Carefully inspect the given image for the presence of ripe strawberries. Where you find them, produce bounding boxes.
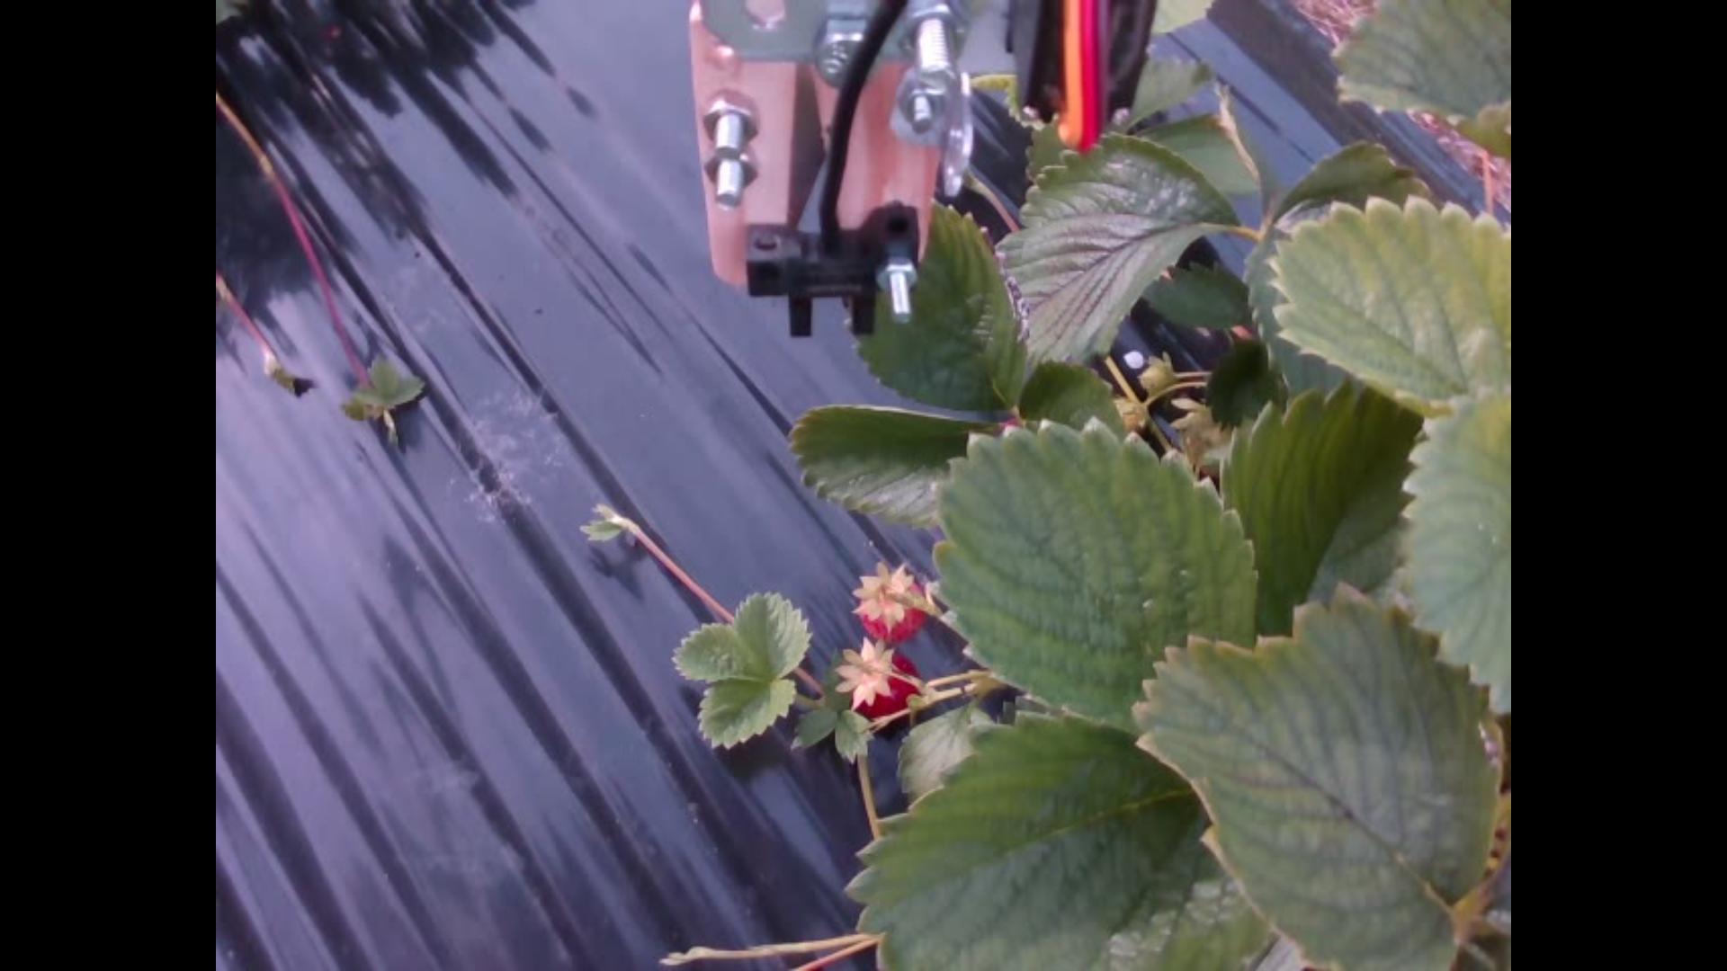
[839,642,922,726]
[859,567,934,640]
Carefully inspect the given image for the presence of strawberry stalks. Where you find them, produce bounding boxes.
[855,662,955,699]
[884,584,962,613]
[1137,380,1200,410]
[1168,357,1219,387]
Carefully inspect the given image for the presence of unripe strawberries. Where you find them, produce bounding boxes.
[1132,352,1180,393]
[1101,390,1149,440]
